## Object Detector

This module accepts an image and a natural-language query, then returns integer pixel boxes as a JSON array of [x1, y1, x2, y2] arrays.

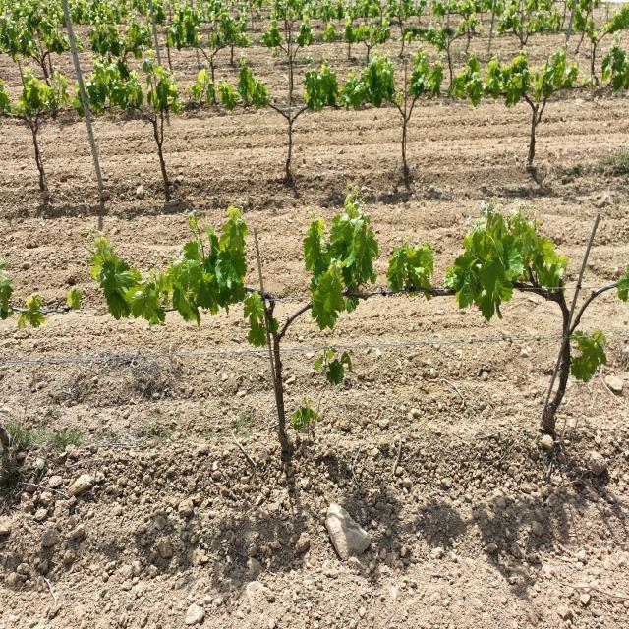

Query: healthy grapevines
[[467, 203, 629, 461], [85, 197, 493, 476]]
